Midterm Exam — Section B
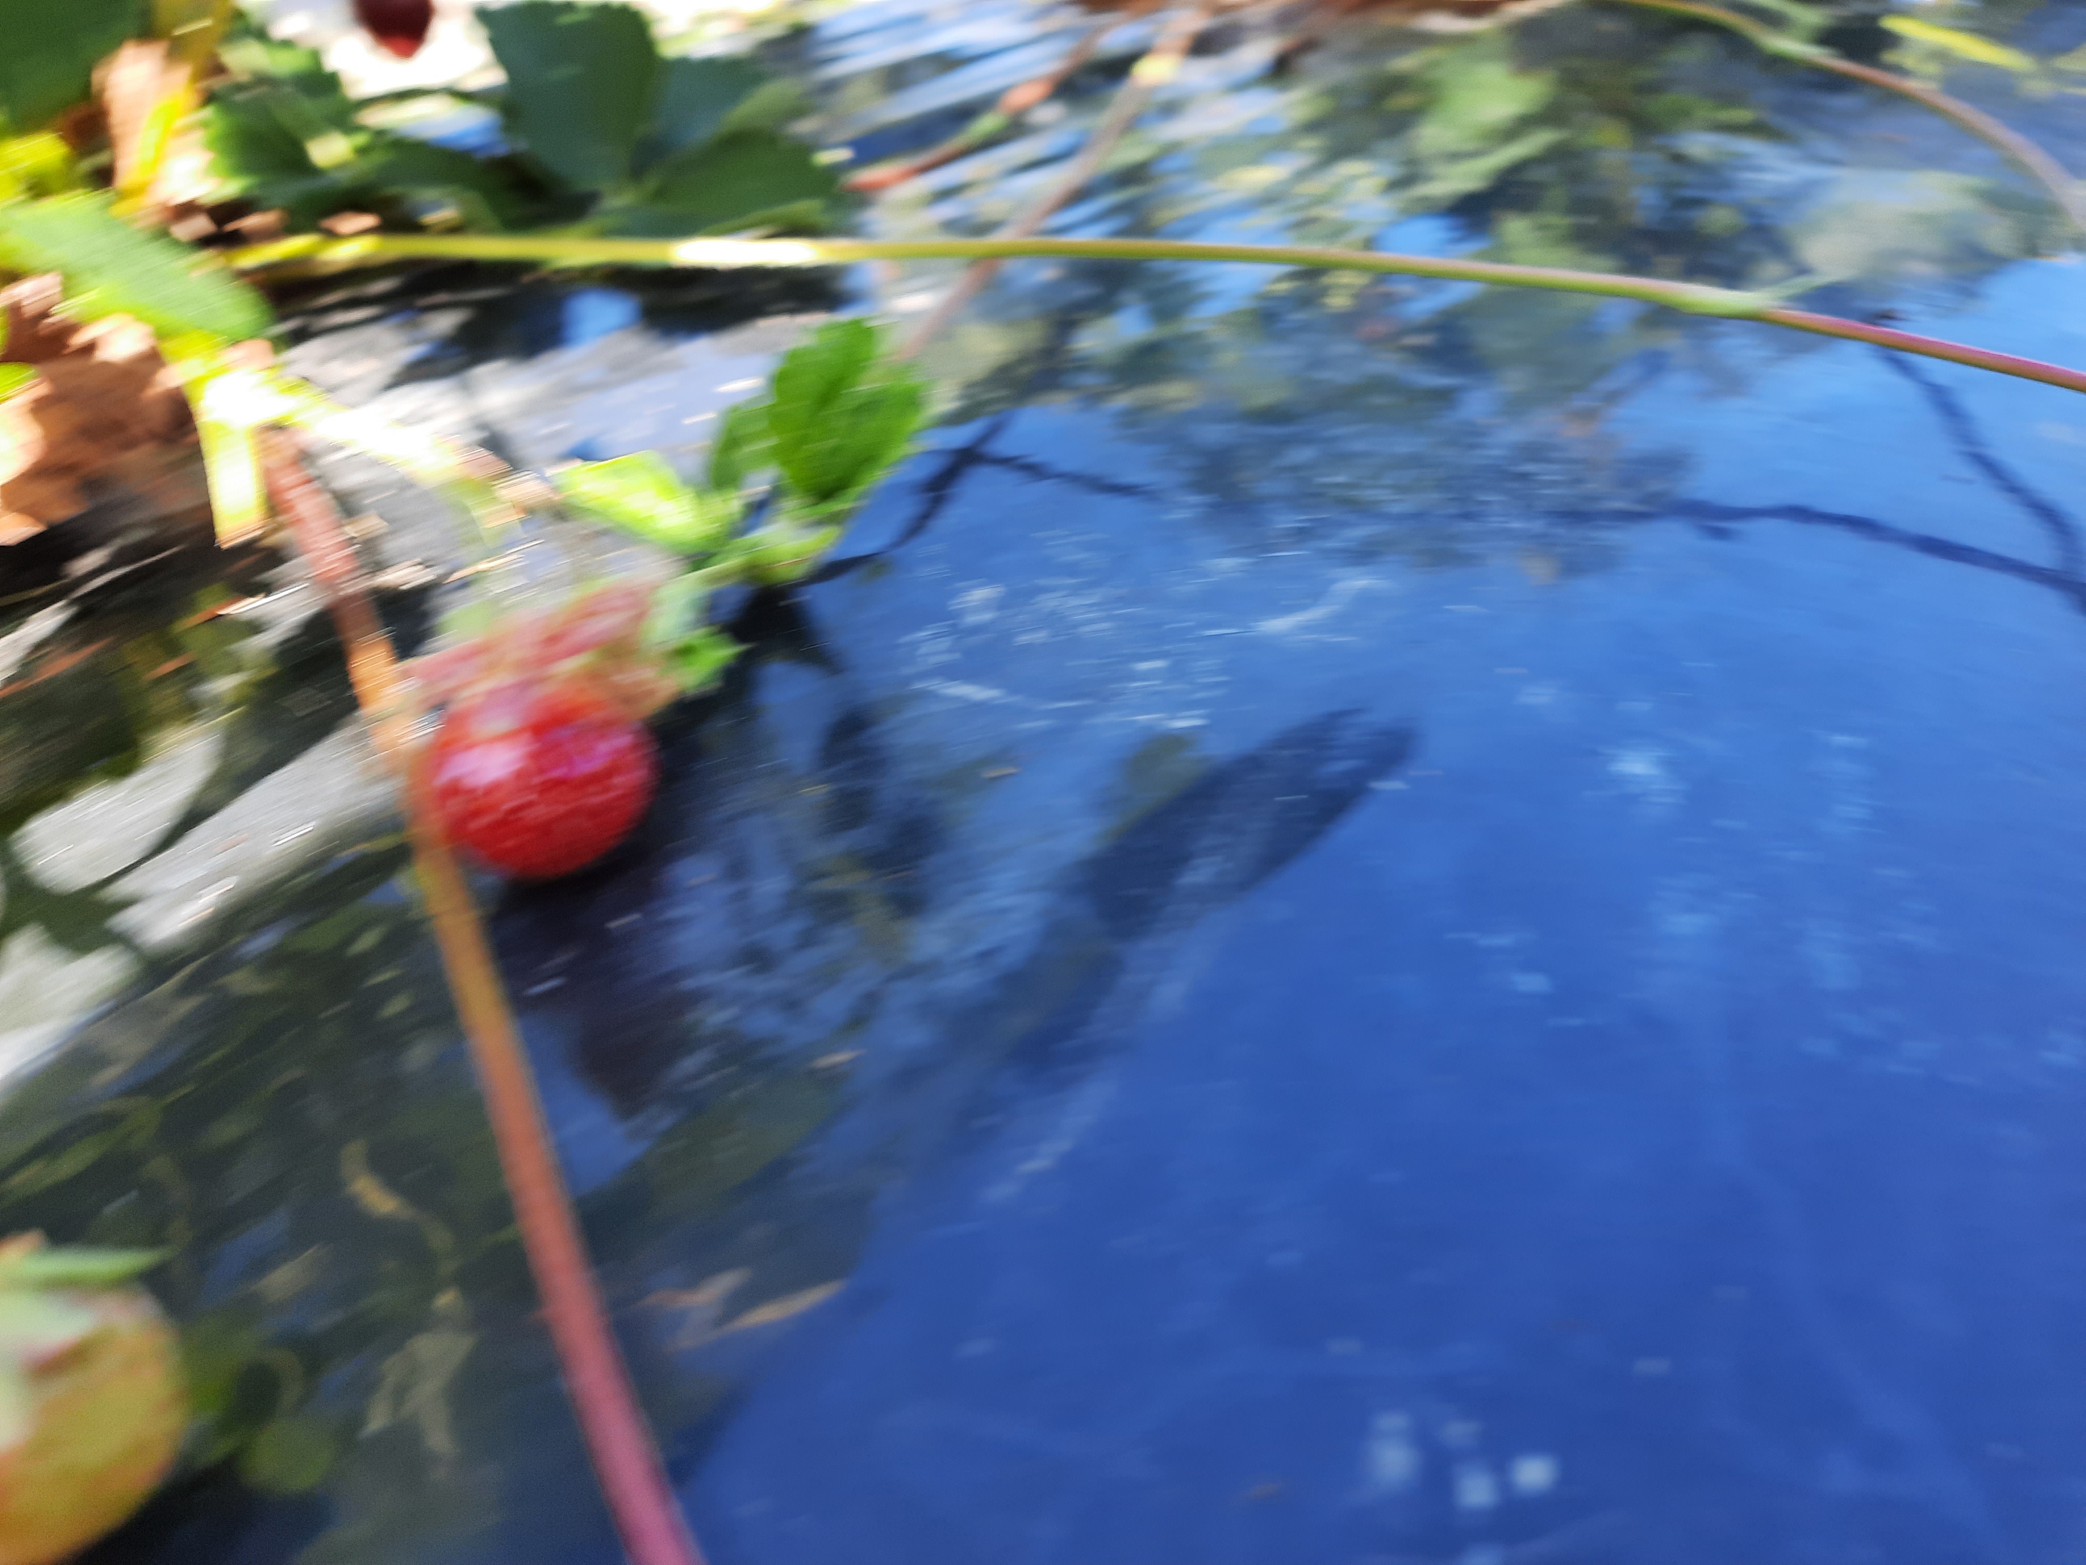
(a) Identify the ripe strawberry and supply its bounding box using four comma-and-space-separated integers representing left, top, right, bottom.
407, 654, 647, 863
